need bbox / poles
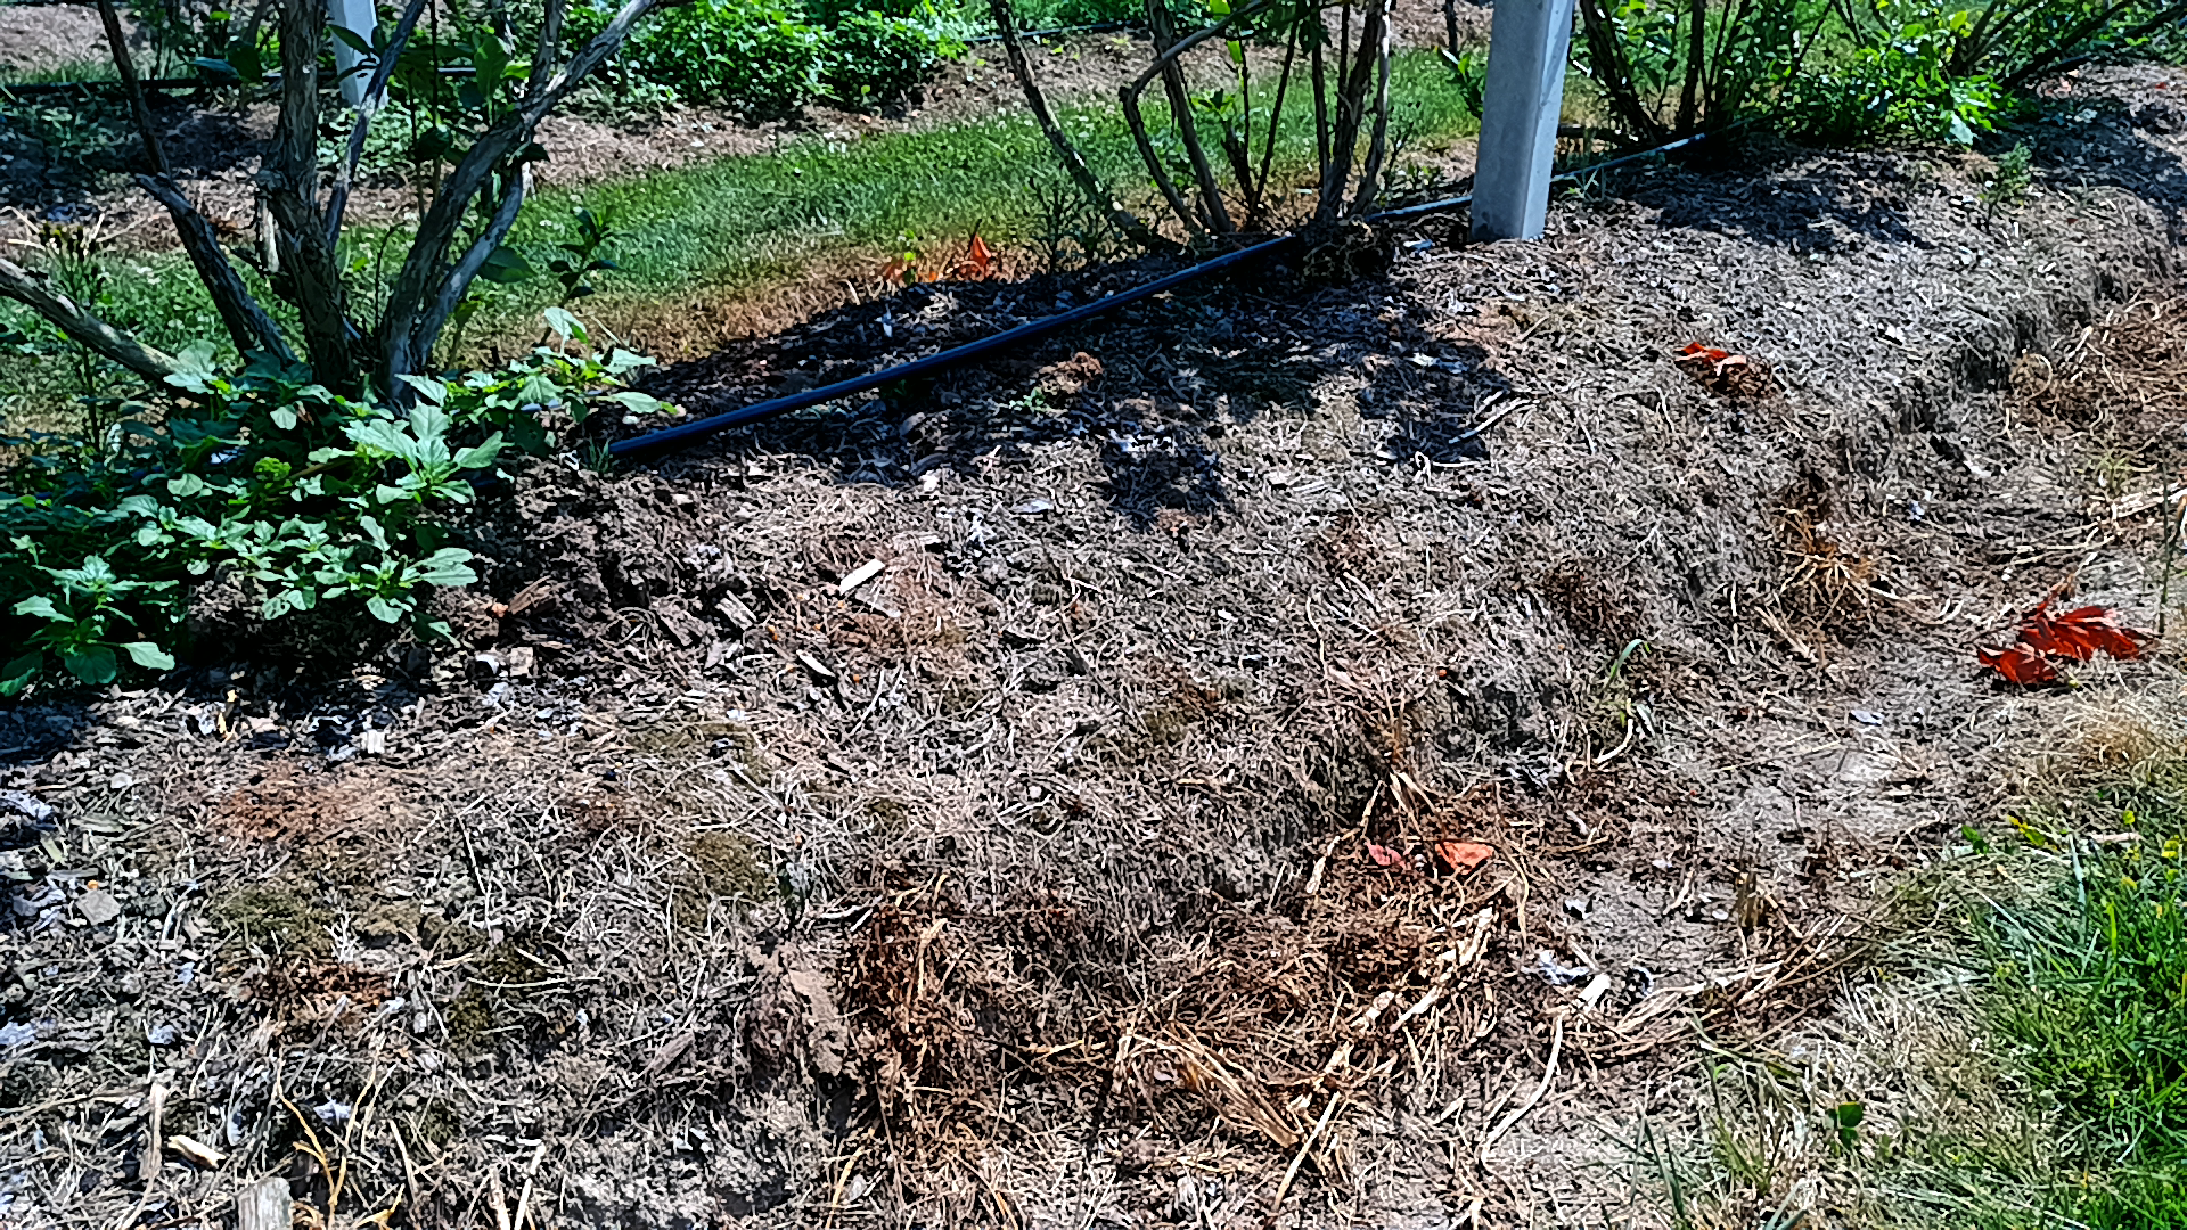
[1465,4,1566,260]
[323,3,393,102]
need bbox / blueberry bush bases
[982,14,1417,306]
[1823,3,2185,169]
[1583,2,1795,183]
[20,107,592,494]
